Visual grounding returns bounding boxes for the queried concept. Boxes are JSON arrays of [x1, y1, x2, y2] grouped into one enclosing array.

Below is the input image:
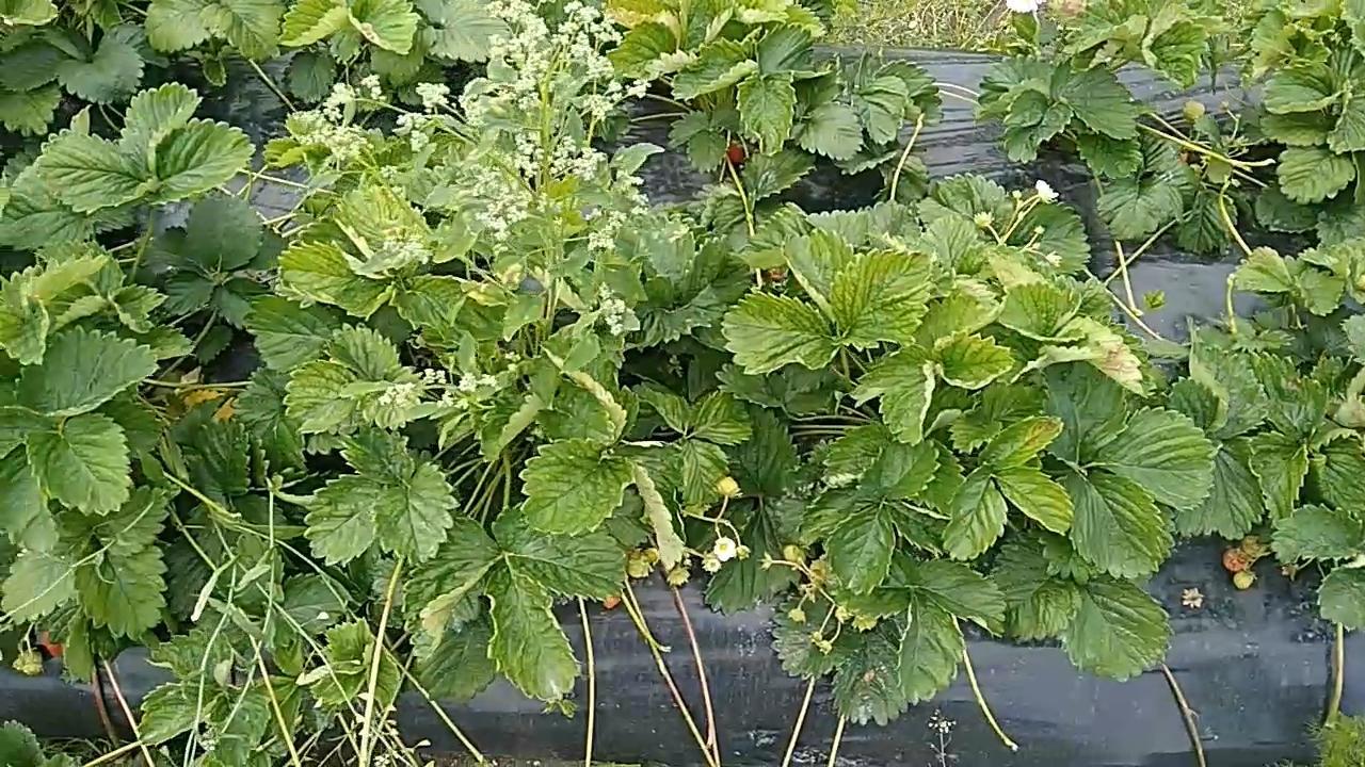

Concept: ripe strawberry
[[721, 134, 758, 170]]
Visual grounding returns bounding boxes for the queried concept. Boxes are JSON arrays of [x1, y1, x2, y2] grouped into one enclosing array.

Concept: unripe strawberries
[[1219, 544, 1251, 574], [1227, 566, 1259, 601]]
